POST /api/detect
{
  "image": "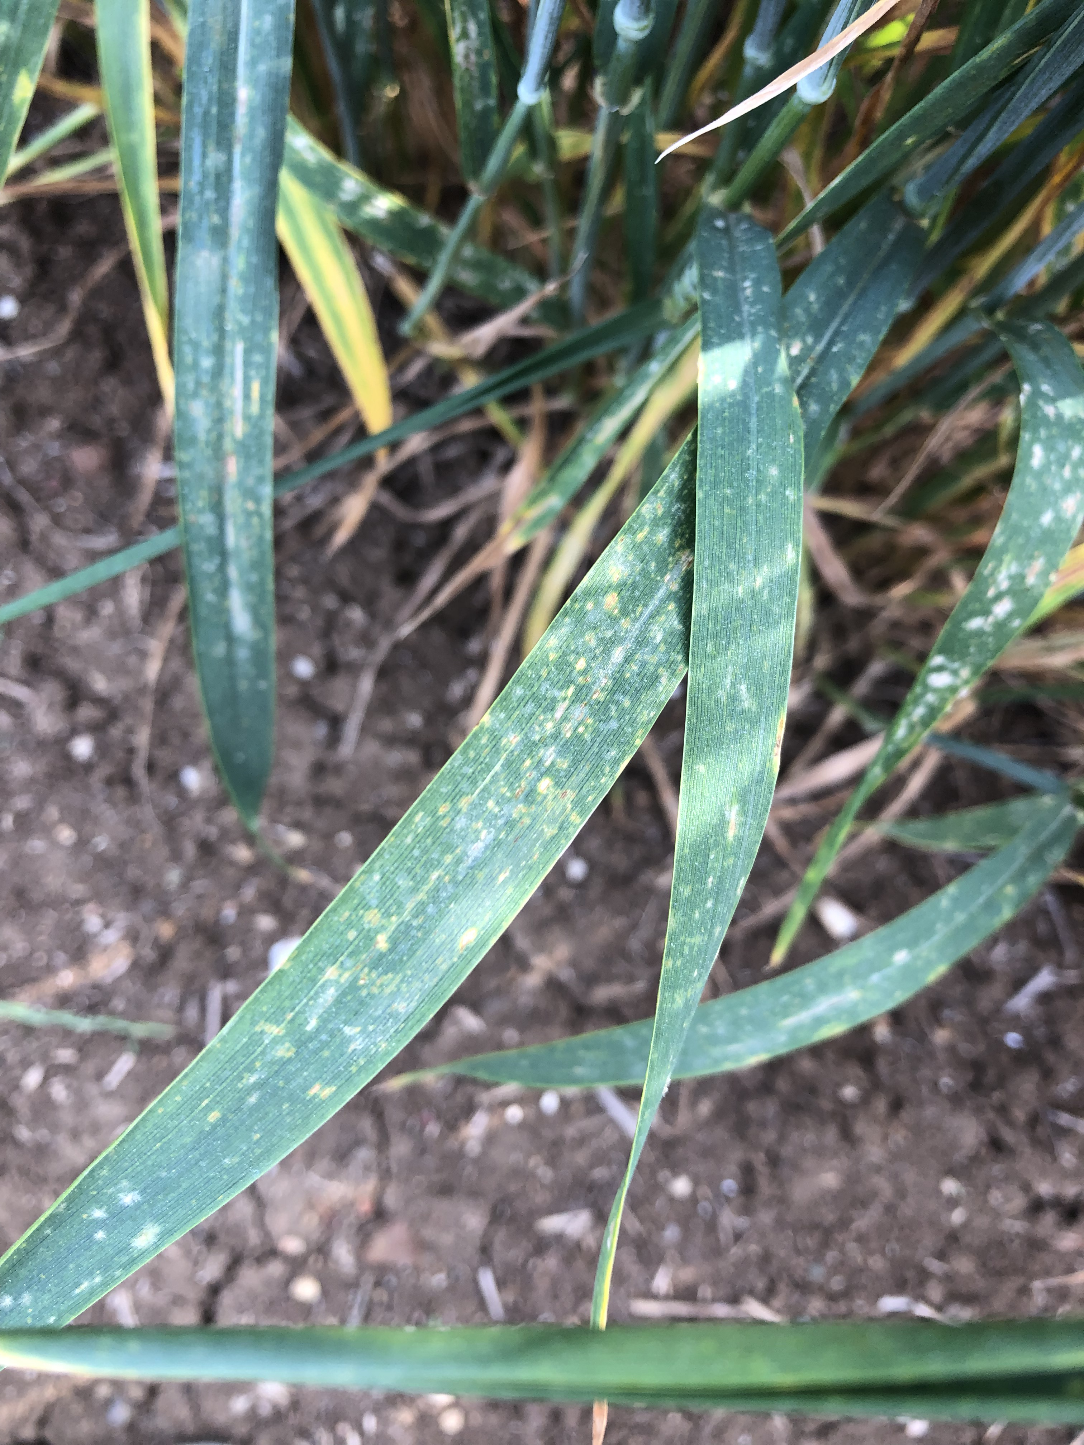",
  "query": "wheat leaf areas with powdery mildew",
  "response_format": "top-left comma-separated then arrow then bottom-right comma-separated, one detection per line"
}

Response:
763,833 -> 1084,1066
404,210 -> 532,313
10,433 -> 723,1289
157,3 -> 303,813
886,315 -> 1084,787
691,206 -> 807,919
558,379 -> 671,474
436,4 -> 528,134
